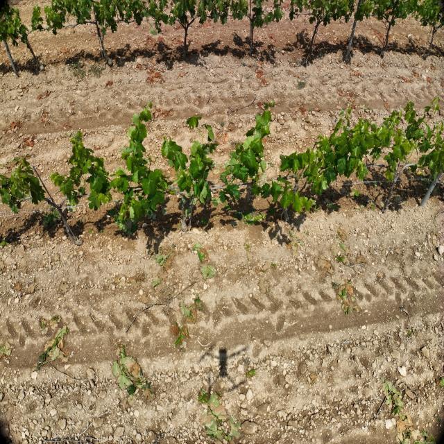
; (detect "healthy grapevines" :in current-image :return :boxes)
[0,127,111,258]
[246,108,328,236]
[329,100,444,228]
[100,103,246,246]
